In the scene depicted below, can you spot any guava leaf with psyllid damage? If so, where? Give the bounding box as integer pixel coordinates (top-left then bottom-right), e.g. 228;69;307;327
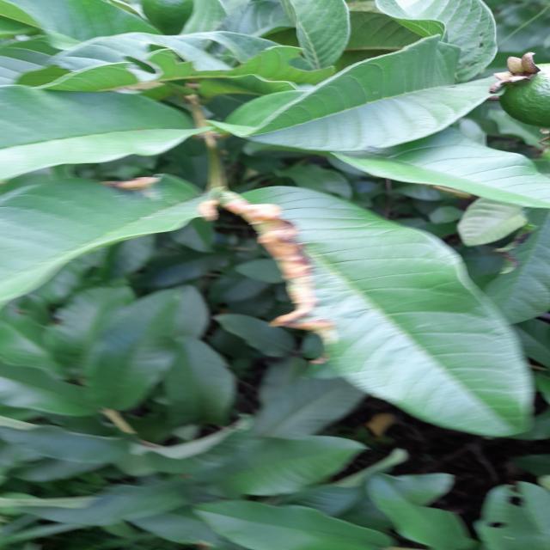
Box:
204;183;550;437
